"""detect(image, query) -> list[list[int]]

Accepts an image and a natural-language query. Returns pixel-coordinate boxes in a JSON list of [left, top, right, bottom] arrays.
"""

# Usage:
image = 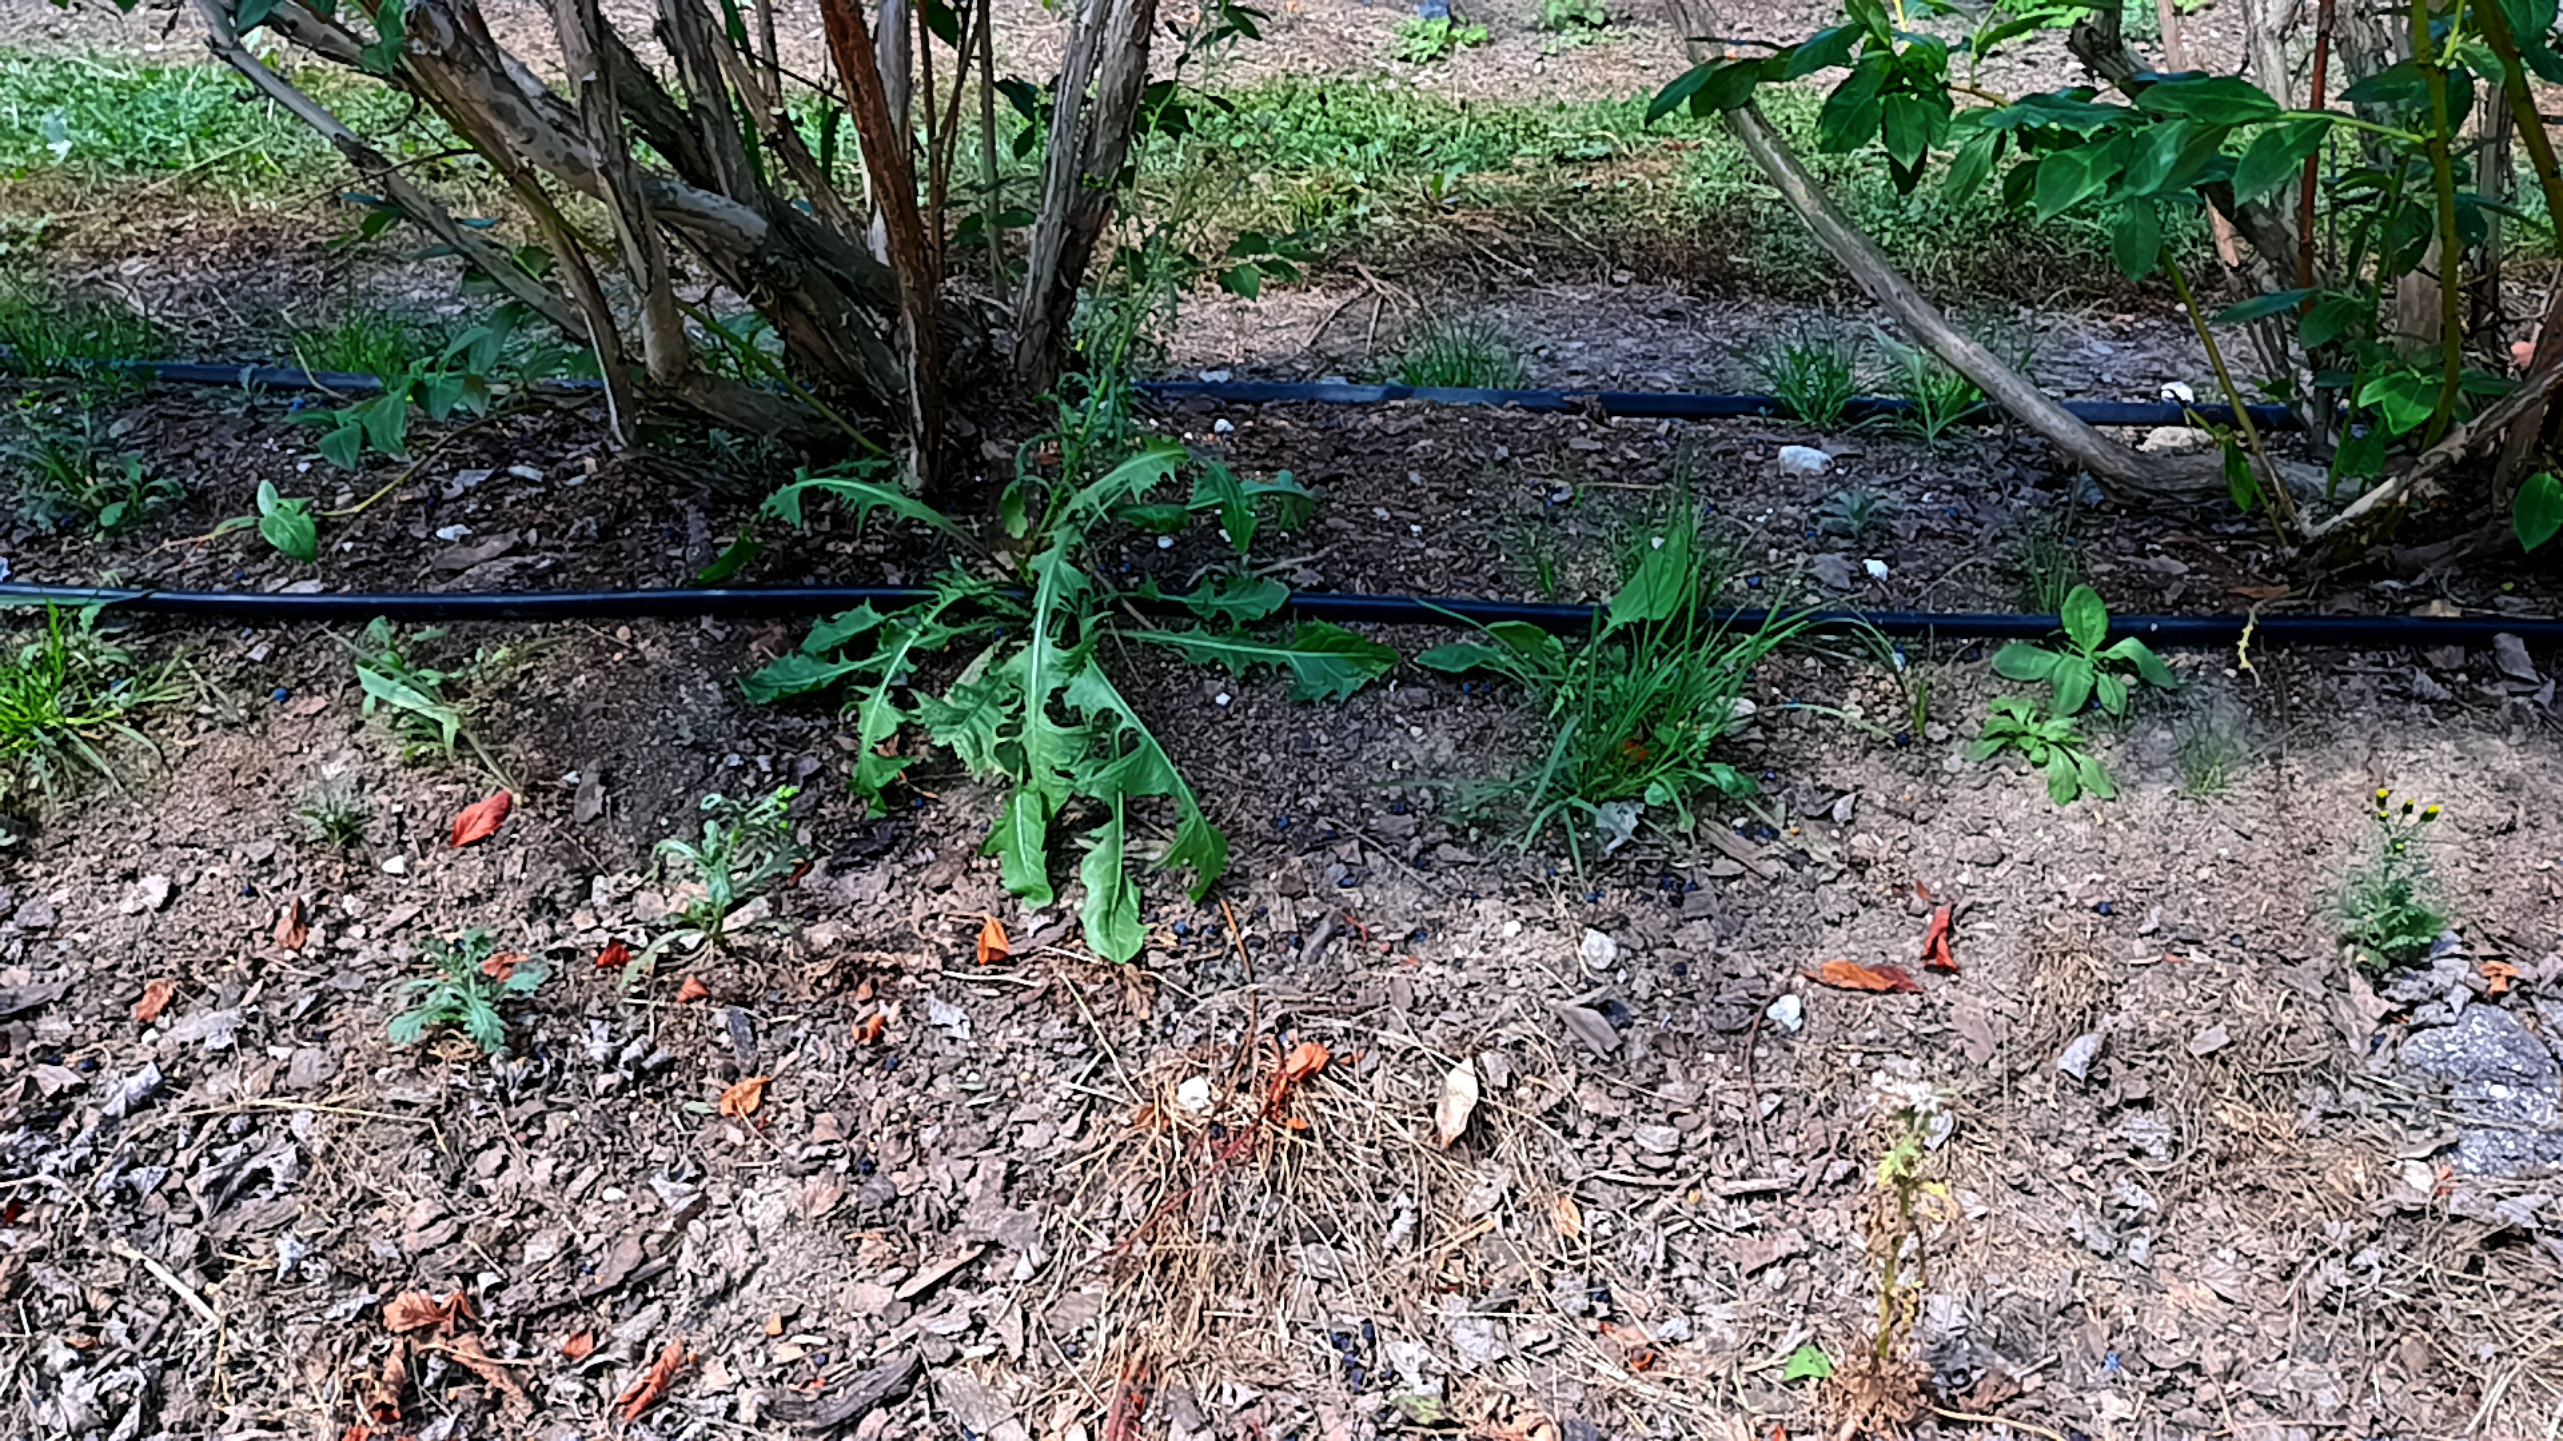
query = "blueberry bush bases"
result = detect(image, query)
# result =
[[510, 116, 1185, 659], [2005, 209, 2563, 675]]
